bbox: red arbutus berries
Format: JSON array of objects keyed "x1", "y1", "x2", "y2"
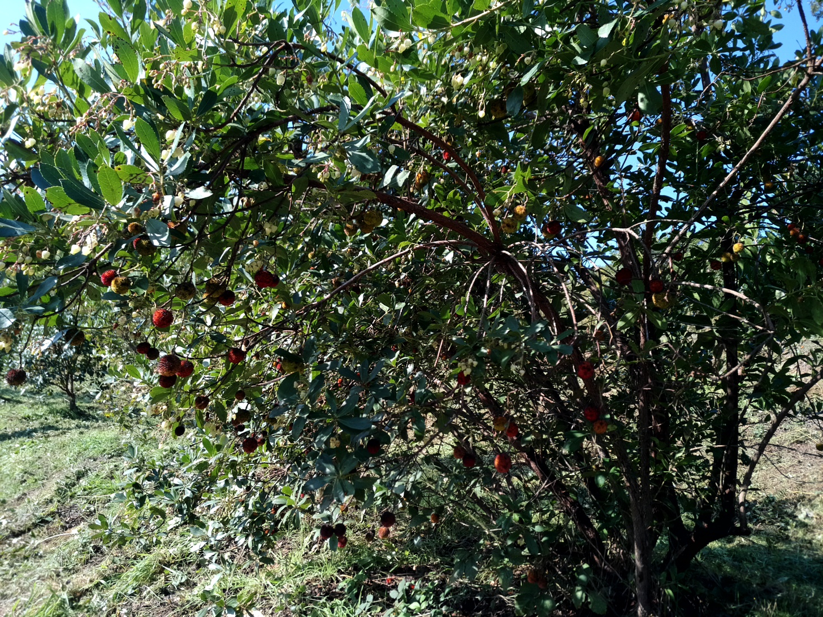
[
  {"x1": 321, "y1": 525, "x2": 332, "y2": 538},
  {"x1": 277, "y1": 363, "x2": 282, "y2": 370},
  {"x1": 631, "y1": 111, "x2": 640, "y2": 121},
  {"x1": 268, "y1": 275, "x2": 280, "y2": 289},
  {"x1": 789, "y1": 227, "x2": 800, "y2": 236},
  {"x1": 651, "y1": 280, "x2": 663, "y2": 293},
  {"x1": 461, "y1": 456, "x2": 477, "y2": 467},
  {"x1": 710, "y1": 259, "x2": 722, "y2": 271},
  {"x1": 338, "y1": 383, "x2": 342, "y2": 387},
  {"x1": 158, "y1": 371, "x2": 177, "y2": 389},
  {"x1": 798, "y1": 234, "x2": 805, "y2": 245},
  {"x1": 577, "y1": 361, "x2": 593, "y2": 377},
  {"x1": 7, "y1": 366, "x2": 25, "y2": 386},
  {"x1": 147, "y1": 348, "x2": 159, "y2": 359},
  {"x1": 195, "y1": 395, "x2": 209, "y2": 409},
  {"x1": 336, "y1": 379, "x2": 342, "y2": 383},
  {"x1": 457, "y1": 370, "x2": 470, "y2": 386},
  {"x1": 582, "y1": 405, "x2": 596, "y2": 419},
  {"x1": 493, "y1": 453, "x2": 510, "y2": 474},
  {"x1": 255, "y1": 270, "x2": 271, "y2": 287},
  {"x1": 242, "y1": 438, "x2": 257, "y2": 453},
  {"x1": 378, "y1": 526, "x2": 389, "y2": 538},
  {"x1": 235, "y1": 390, "x2": 246, "y2": 400},
  {"x1": 452, "y1": 446, "x2": 465, "y2": 458},
  {"x1": 257, "y1": 438, "x2": 264, "y2": 445},
  {"x1": 101, "y1": 270, "x2": 117, "y2": 284},
  {"x1": 506, "y1": 422, "x2": 518, "y2": 437},
  {"x1": 153, "y1": 310, "x2": 173, "y2": 328},
  {"x1": 131, "y1": 236, "x2": 143, "y2": 249},
  {"x1": 381, "y1": 511, "x2": 395, "y2": 527},
  {"x1": 442, "y1": 151, "x2": 450, "y2": 161},
  {"x1": 786, "y1": 222, "x2": 796, "y2": 229},
  {"x1": 335, "y1": 523, "x2": 345, "y2": 536},
  {"x1": 337, "y1": 536, "x2": 346, "y2": 548},
  {"x1": 135, "y1": 341, "x2": 150, "y2": 354},
  {"x1": 229, "y1": 348, "x2": 244, "y2": 363},
  {"x1": 547, "y1": 222, "x2": 560, "y2": 235},
  {"x1": 696, "y1": 130, "x2": 707, "y2": 140},
  {"x1": 366, "y1": 438, "x2": 380, "y2": 453},
  {"x1": 220, "y1": 291, "x2": 234, "y2": 305},
  {"x1": 176, "y1": 360, "x2": 194, "y2": 377},
  {"x1": 158, "y1": 354, "x2": 179, "y2": 376},
  {"x1": 617, "y1": 268, "x2": 633, "y2": 284}
]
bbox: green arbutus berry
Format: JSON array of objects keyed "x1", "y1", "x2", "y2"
[{"x1": 282, "y1": 356, "x2": 299, "y2": 372}]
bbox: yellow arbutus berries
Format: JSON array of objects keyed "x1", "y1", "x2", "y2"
[
  {"x1": 593, "y1": 155, "x2": 603, "y2": 167},
  {"x1": 205, "y1": 276, "x2": 224, "y2": 296},
  {"x1": 128, "y1": 222, "x2": 143, "y2": 234},
  {"x1": 138, "y1": 237, "x2": 157, "y2": 254},
  {"x1": 111, "y1": 275, "x2": 129, "y2": 296},
  {"x1": 272, "y1": 362, "x2": 278, "y2": 366},
  {"x1": 593, "y1": 421, "x2": 607, "y2": 435},
  {"x1": 176, "y1": 282, "x2": 195, "y2": 300},
  {"x1": 202, "y1": 293, "x2": 217, "y2": 306},
  {"x1": 492, "y1": 416, "x2": 507, "y2": 430},
  {"x1": 500, "y1": 217, "x2": 517, "y2": 233},
  {"x1": 720, "y1": 251, "x2": 731, "y2": 262},
  {"x1": 430, "y1": 514, "x2": 441, "y2": 523},
  {"x1": 657, "y1": 118, "x2": 662, "y2": 123},
  {"x1": 360, "y1": 221, "x2": 374, "y2": 233},
  {"x1": 729, "y1": 253, "x2": 740, "y2": 263},
  {"x1": 364, "y1": 211, "x2": 378, "y2": 224},
  {"x1": 66, "y1": 330, "x2": 84, "y2": 346},
  {"x1": 236, "y1": 409, "x2": 250, "y2": 422},
  {"x1": 344, "y1": 223, "x2": 356, "y2": 235},
  {"x1": 763, "y1": 180, "x2": 774, "y2": 190},
  {"x1": 652, "y1": 291, "x2": 670, "y2": 308},
  {"x1": 732, "y1": 244, "x2": 744, "y2": 254},
  {"x1": 512, "y1": 206, "x2": 526, "y2": 220}
]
